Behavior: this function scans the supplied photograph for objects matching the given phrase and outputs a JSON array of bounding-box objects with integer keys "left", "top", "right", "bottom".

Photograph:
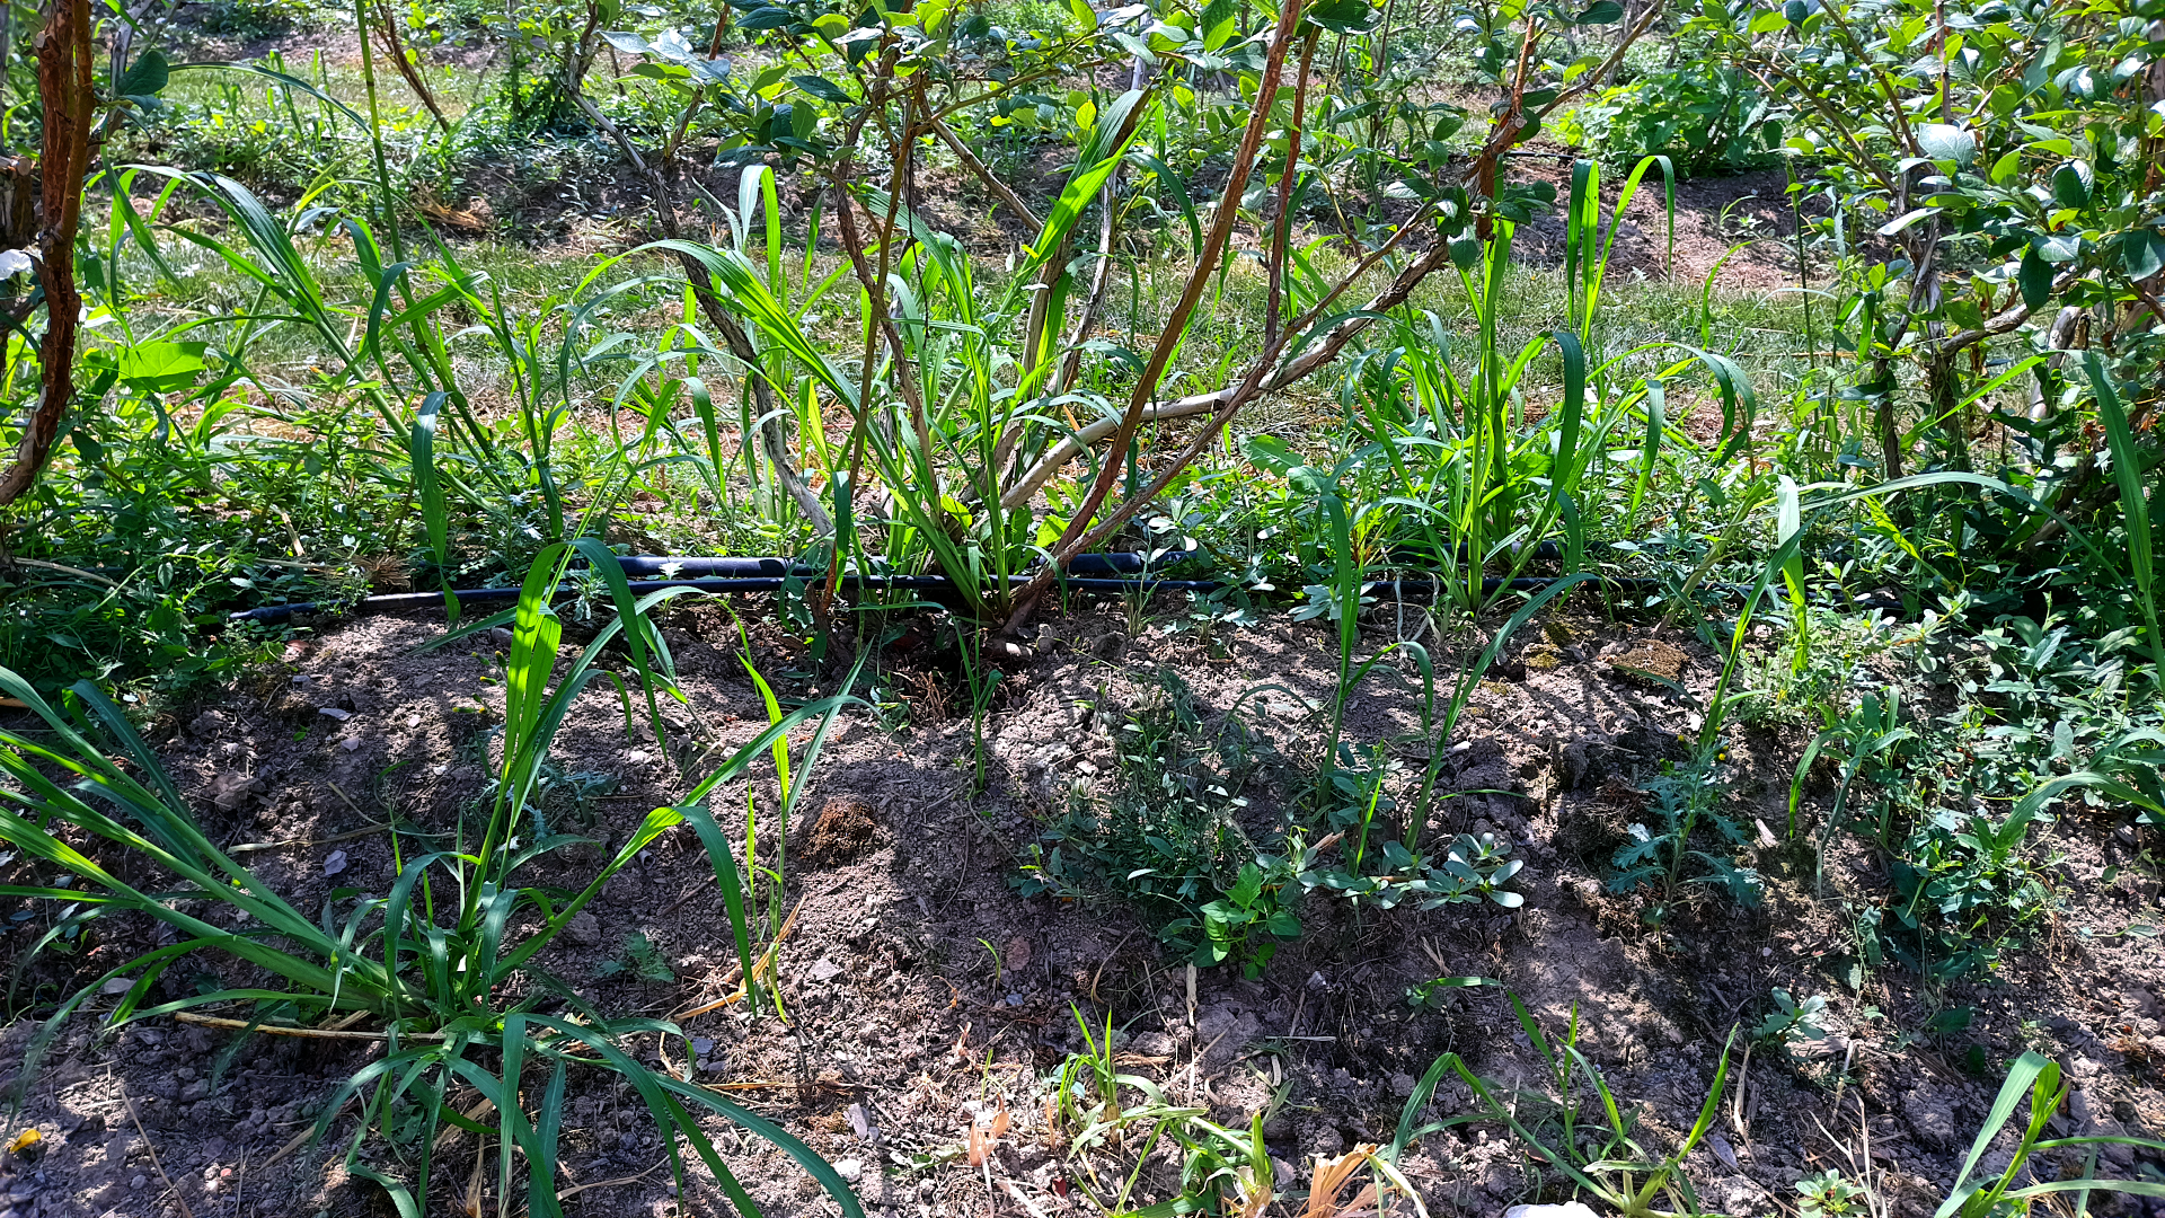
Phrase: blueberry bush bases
[
  {"left": 730, "top": 388, "right": 1257, "bottom": 716},
  {"left": 1872, "top": 364, "right": 2164, "bottom": 705},
  {"left": 445, "top": 70, "right": 610, "bottom": 161},
  {"left": 3, "top": 292, "right": 175, "bottom": 744},
  {"left": 1635, "top": 88, "right": 1790, "bottom": 200}
]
